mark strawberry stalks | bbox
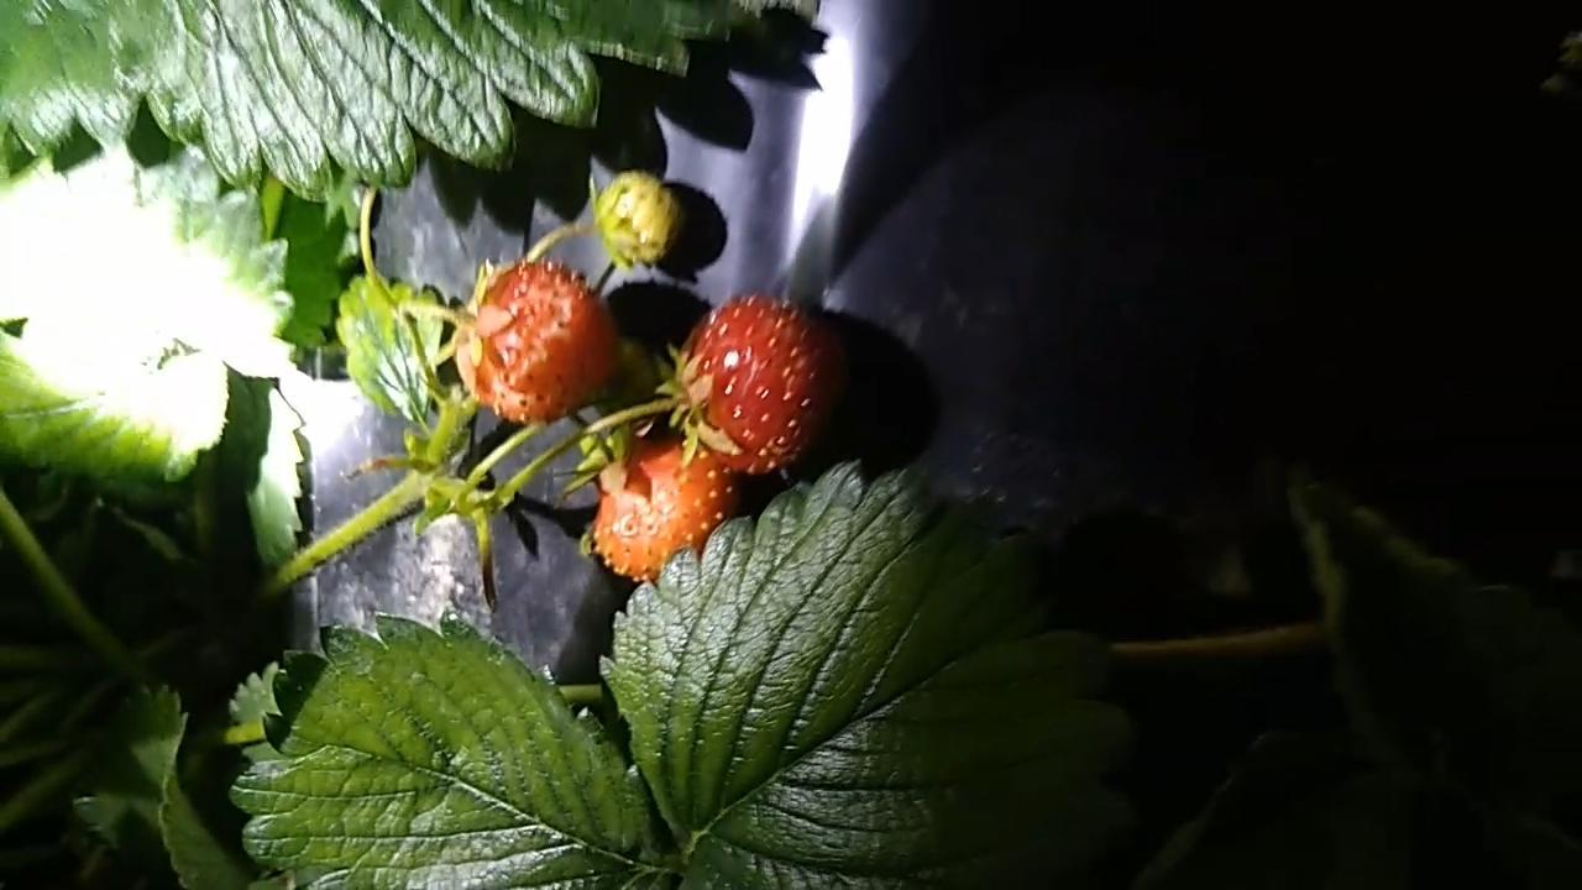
[560,372,724,467]
[384,288,499,344]
[525,196,615,249]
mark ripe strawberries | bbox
[586,454,740,577]
[683,287,845,472]
[447,254,611,422]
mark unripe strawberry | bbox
[579,165,694,261]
